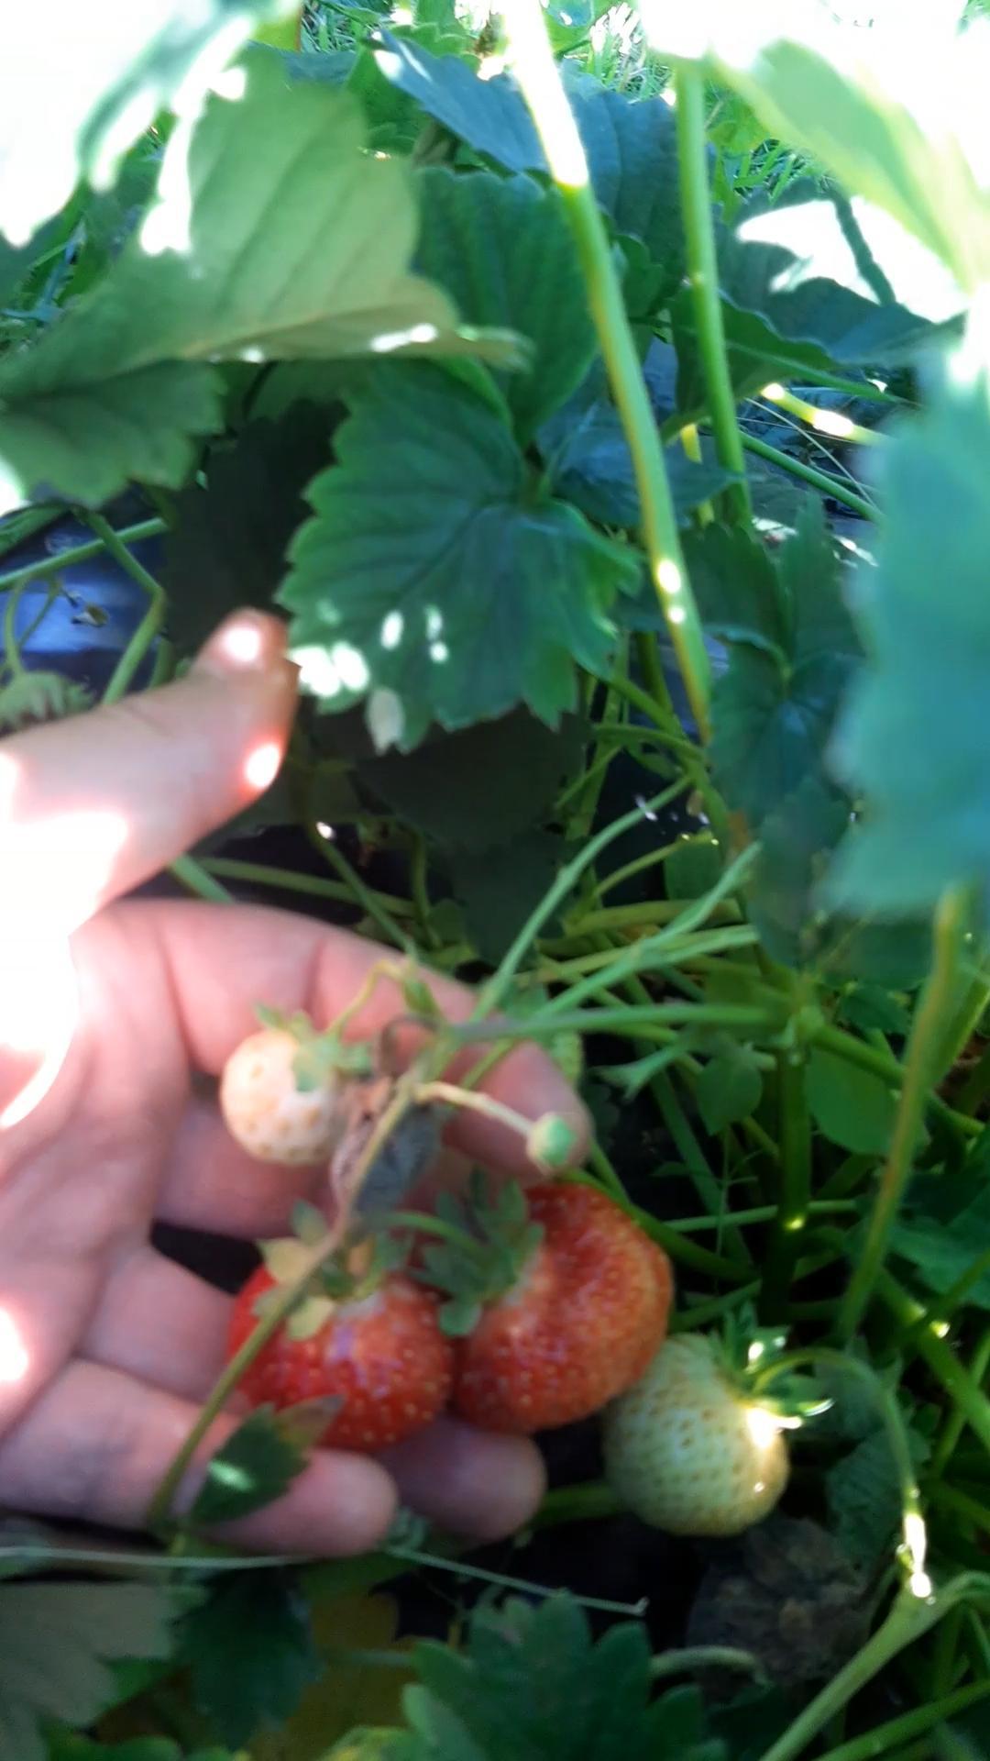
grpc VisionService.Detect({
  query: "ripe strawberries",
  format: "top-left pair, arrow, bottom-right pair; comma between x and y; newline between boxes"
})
448,1172 -> 667,1431
225,1224 -> 458,1456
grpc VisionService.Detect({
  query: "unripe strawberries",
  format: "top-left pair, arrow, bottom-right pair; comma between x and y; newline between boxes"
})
204,1020 -> 369,1176
606,1335 -> 794,1552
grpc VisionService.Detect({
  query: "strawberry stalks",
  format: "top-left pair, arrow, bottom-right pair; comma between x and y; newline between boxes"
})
391,1185 -> 513,1291
307,950 -> 389,1062
723,1334 -> 880,1423
298,1202 -> 378,1313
